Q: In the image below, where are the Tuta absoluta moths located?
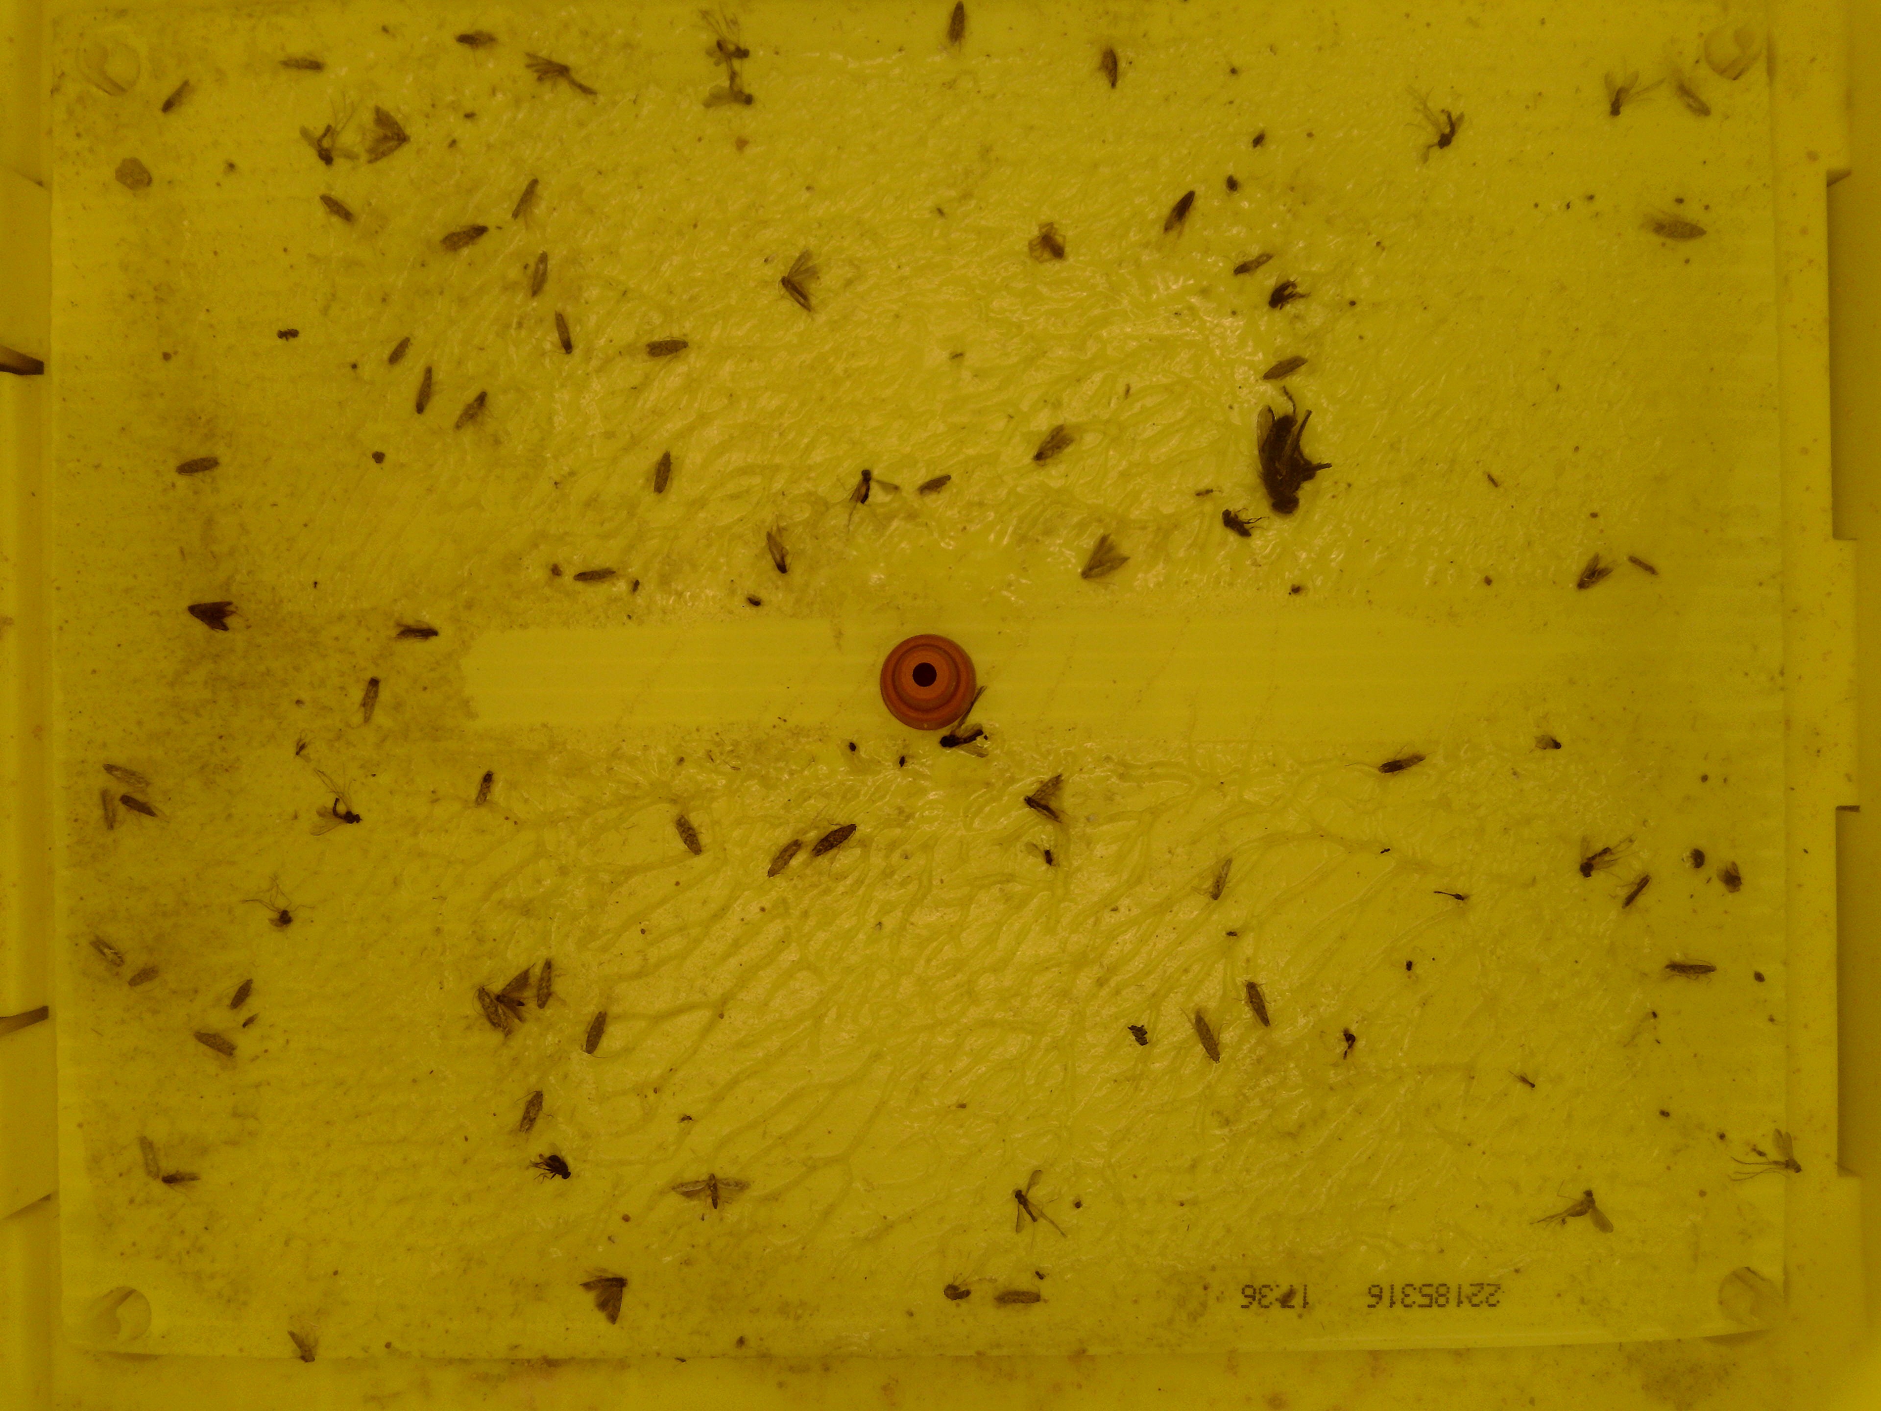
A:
[1240,980,1268,1025]
[474,981,489,1038]
[580,1272,626,1325]
[582,1008,606,1054]
[651,451,678,496]
[778,248,818,313]
[1025,221,1064,263]
[493,964,529,1031]
[118,792,157,821]
[913,476,949,496]
[317,193,354,225]
[1270,353,1316,378]
[196,1035,239,1069]
[1616,873,1648,912]
[360,104,409,164]
[944,1,966,49]
[1626,553,1657,576]
[523,248,549,296]
[384,335,410,368]
[1023,772,1064,824]
[1079,533,1129,581]
[994,1284,1049,1307]
[523,40,598,101]
[97,787,116,829]
[764,525,788,571]
[552,310,573,353]
[394,622,436,642]
[1030,422,1074,465]
[810,824,855,859]
[765,837,801,876]
[226,983,252,1012]
[113,156,150,193]
[1231,251,1272,276]
[1376,751,1423,775]
[472,768,495,808]
[89,935,121,968]
[159,78,193,115]
[275,54,324,73]
[454,389,486,432]
[1667,953,1720,981]
[668,1171,748,1217]
[1160,189,1194,236]
[673,813,700,854]
[175,456,218,476]
[127,963,158,988]
[573,567,616,585]
[1654,217,1705,242]
[1575,551,1610,589]
[412,364,434,413]
[1099,45,1118,88]
[531,957,558,1009]
[185,600,236,632]
[354,676,379,726]
[1189,1007,1220,1062]
[102,763,149,788]
[517,1089,543,1132]
[136,1136,153,1179]
[439,222,488,252]
[454,28,494,67]
[158,1162,200,1189]
[643,337,687,359]
[513,177,538,223]
[1205,857,1230,900]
